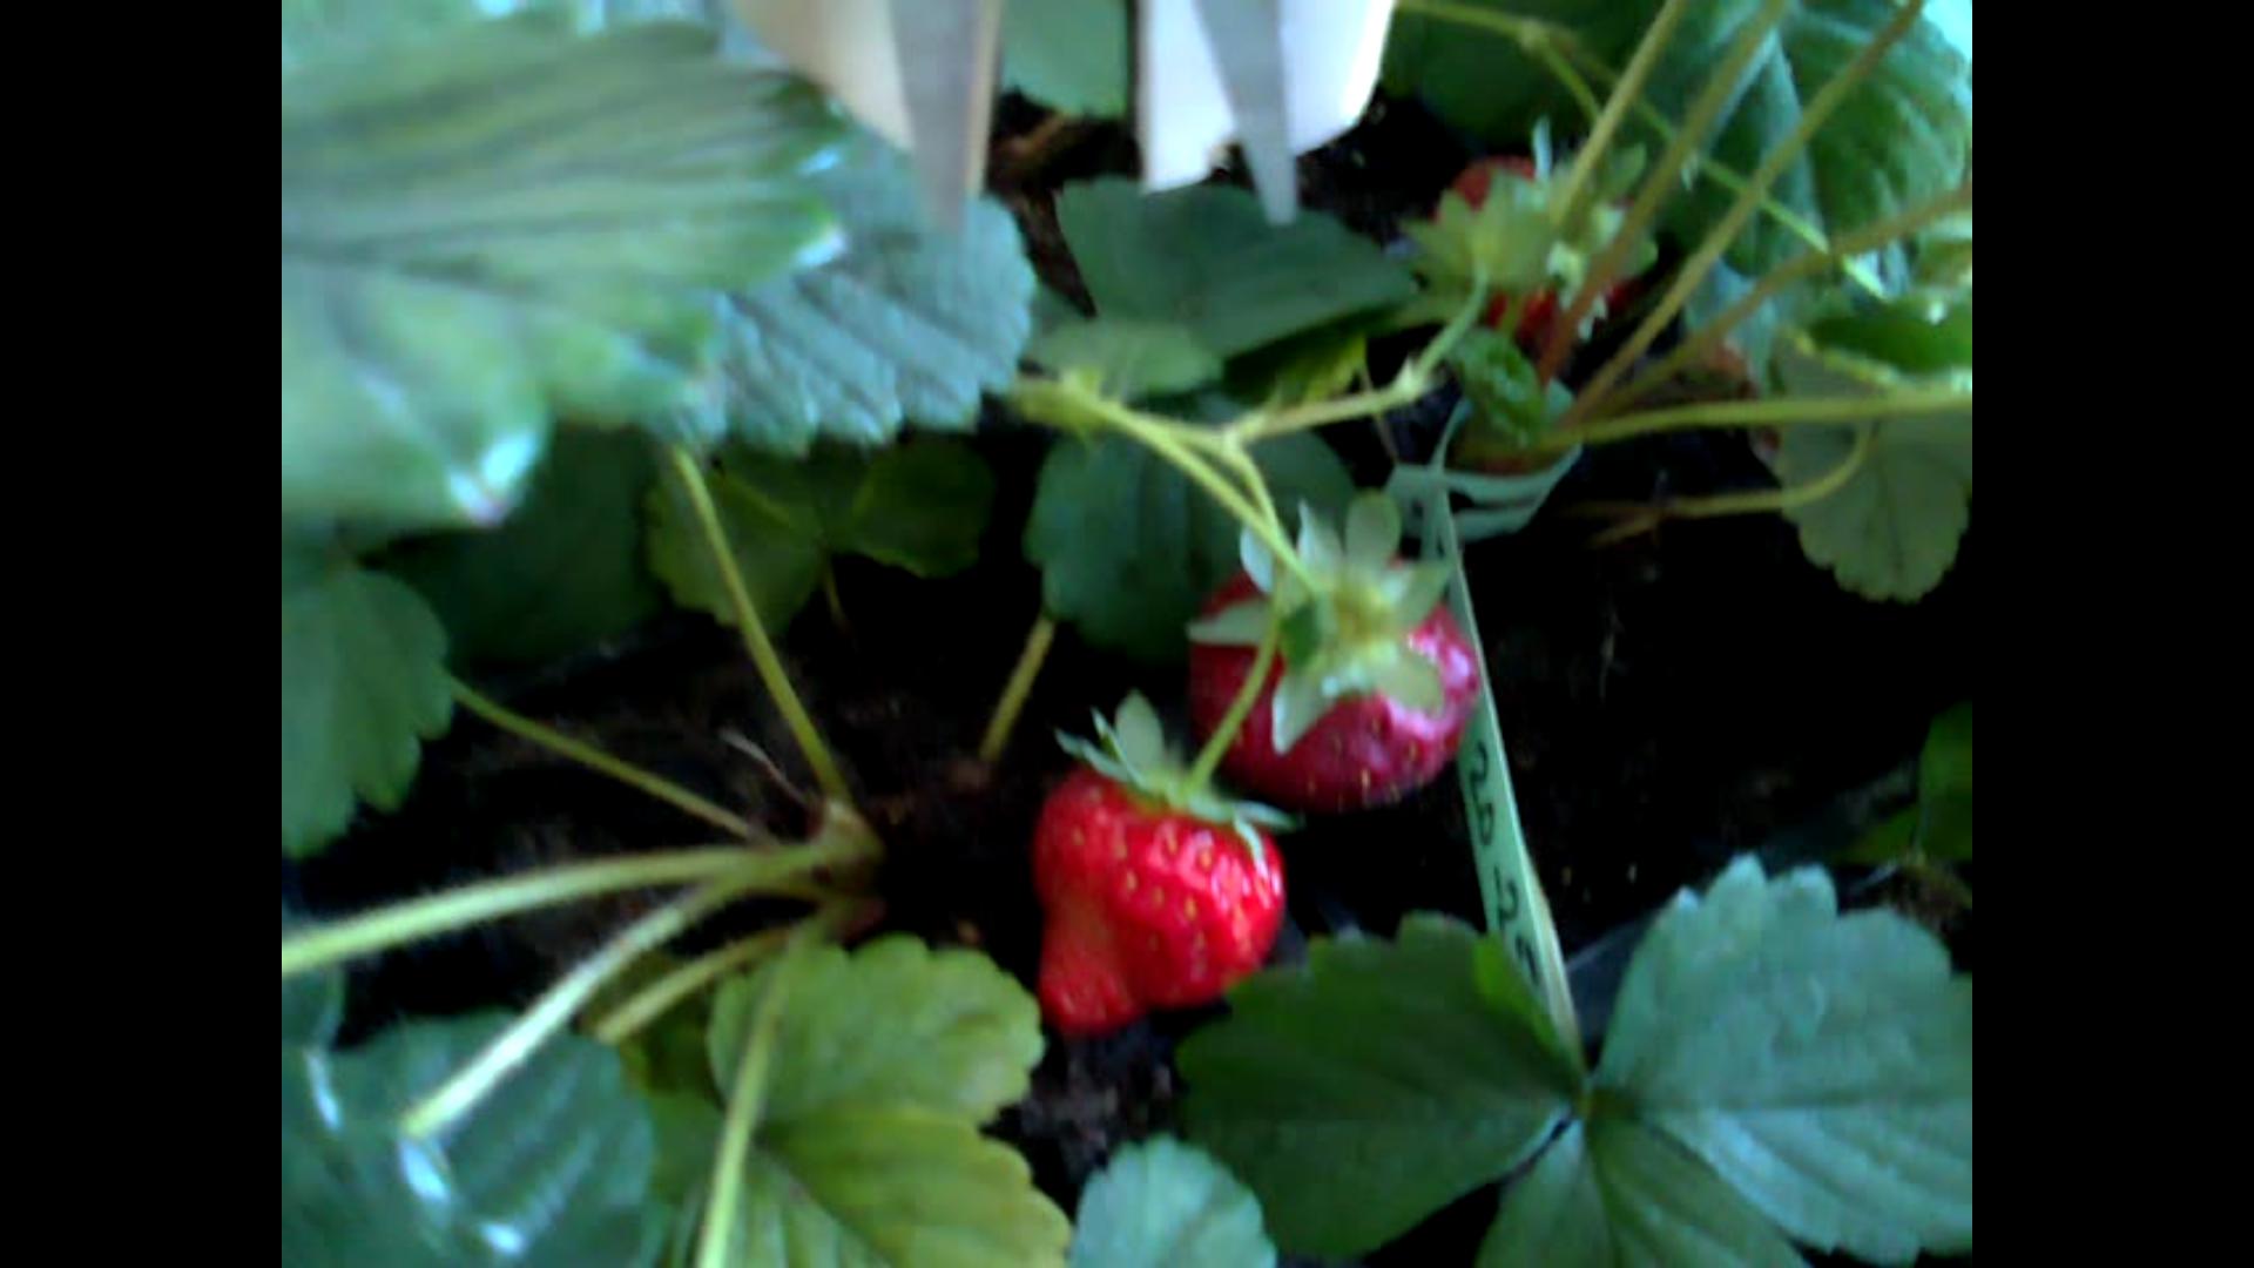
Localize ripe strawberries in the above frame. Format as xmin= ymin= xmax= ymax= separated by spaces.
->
xmin=1017 ymin=716 xmax=1288 ymax=1051
xmin=1197 ymin=586 xmax=1550 ymax=795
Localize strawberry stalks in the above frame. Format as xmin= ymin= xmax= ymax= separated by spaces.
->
xmin=1148 ymin=592 xmax=1297 ymax=861
xmin=1138 ymin=417 xmax=1428 ymax=689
